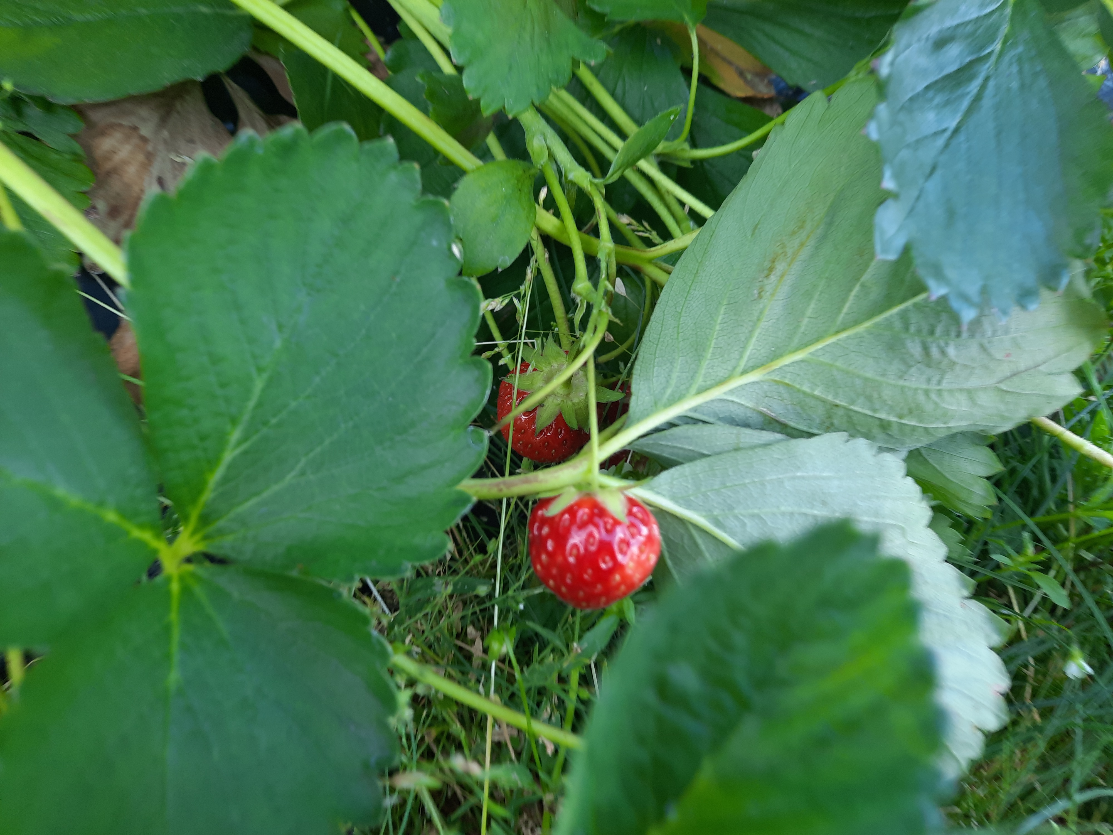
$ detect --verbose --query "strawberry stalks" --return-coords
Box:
[574,447,612,519]
[542,304,605,406]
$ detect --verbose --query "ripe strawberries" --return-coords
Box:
[506,356,595,465]
[536,489,648,602]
